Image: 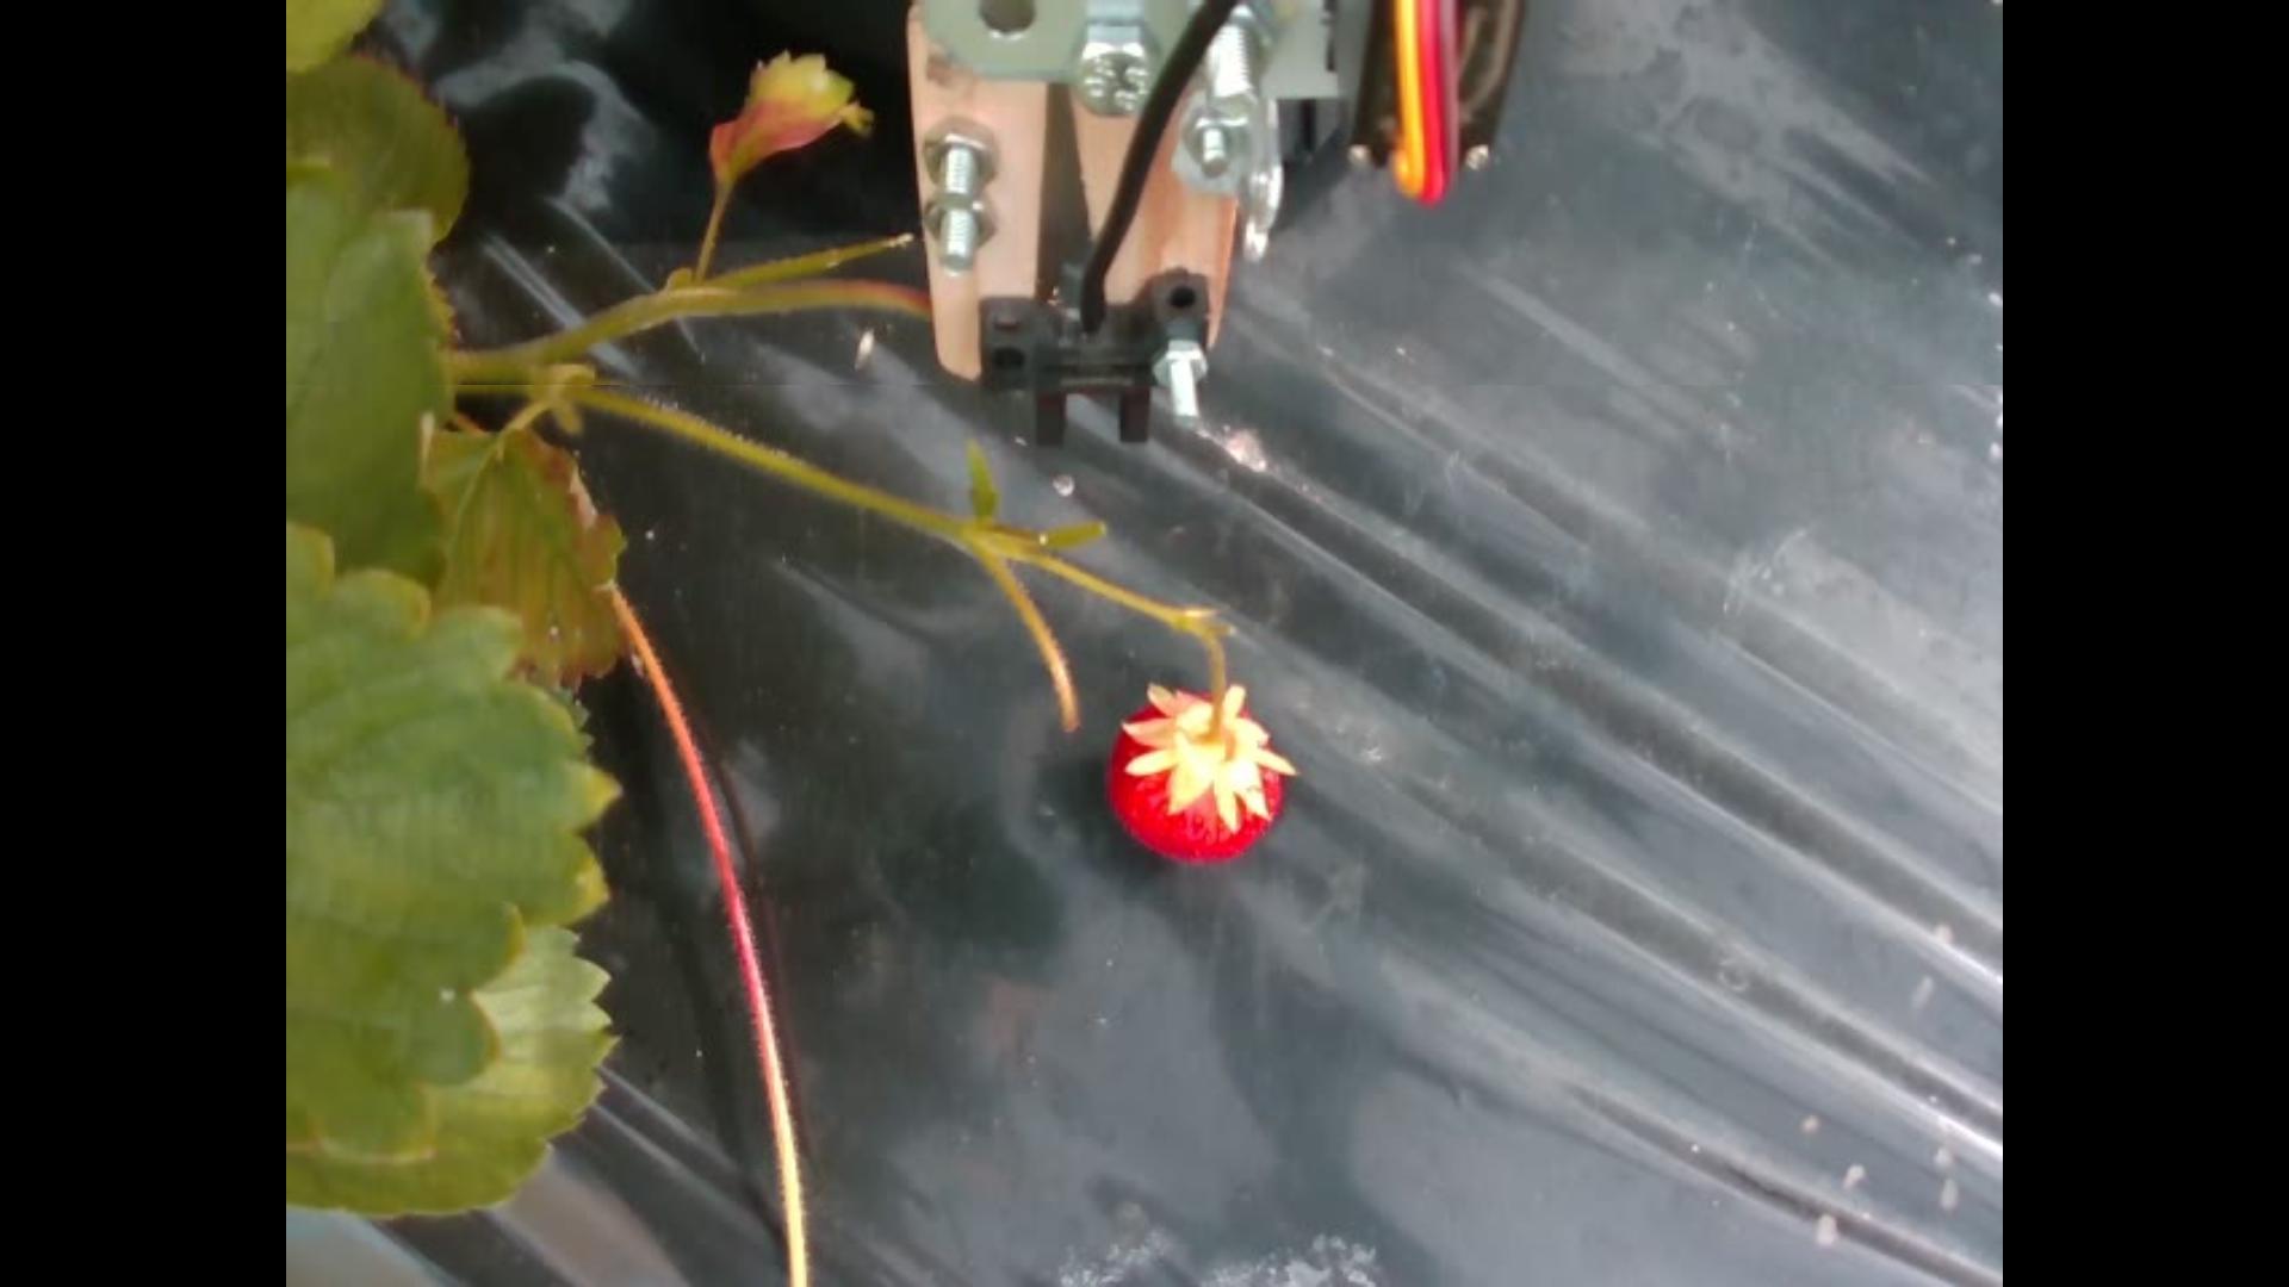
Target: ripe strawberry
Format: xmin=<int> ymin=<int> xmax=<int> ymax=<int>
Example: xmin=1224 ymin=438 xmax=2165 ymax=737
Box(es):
xmin=1099 ymin=659 xmax=1311 ymax=865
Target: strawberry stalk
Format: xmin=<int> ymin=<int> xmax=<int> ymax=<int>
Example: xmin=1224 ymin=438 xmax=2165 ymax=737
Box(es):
xmin=1091 ymin=585 xmax=1248 ymax=753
